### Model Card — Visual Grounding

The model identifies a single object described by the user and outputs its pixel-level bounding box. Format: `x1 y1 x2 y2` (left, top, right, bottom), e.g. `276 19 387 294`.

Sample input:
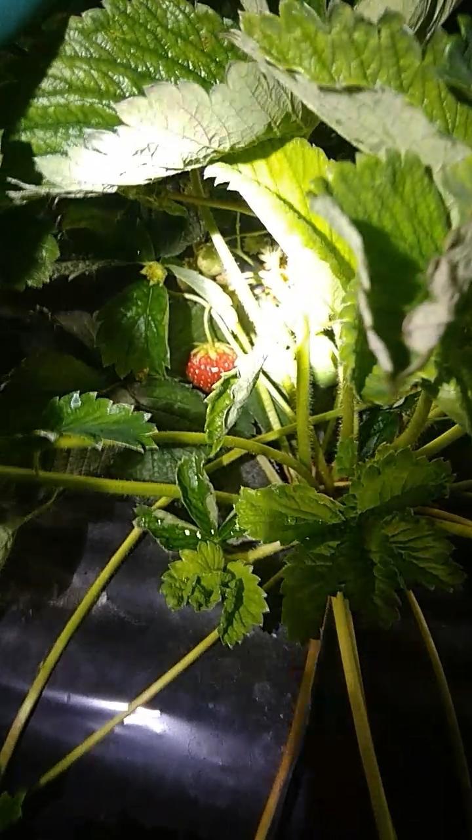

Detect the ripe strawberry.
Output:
188 344 239 385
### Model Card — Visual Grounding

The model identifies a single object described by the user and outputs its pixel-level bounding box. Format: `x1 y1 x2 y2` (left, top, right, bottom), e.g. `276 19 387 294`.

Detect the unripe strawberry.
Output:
195 248 228 280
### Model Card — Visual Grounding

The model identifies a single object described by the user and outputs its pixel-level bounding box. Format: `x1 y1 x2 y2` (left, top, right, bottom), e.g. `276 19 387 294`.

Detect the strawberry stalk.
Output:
201 305 221 357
